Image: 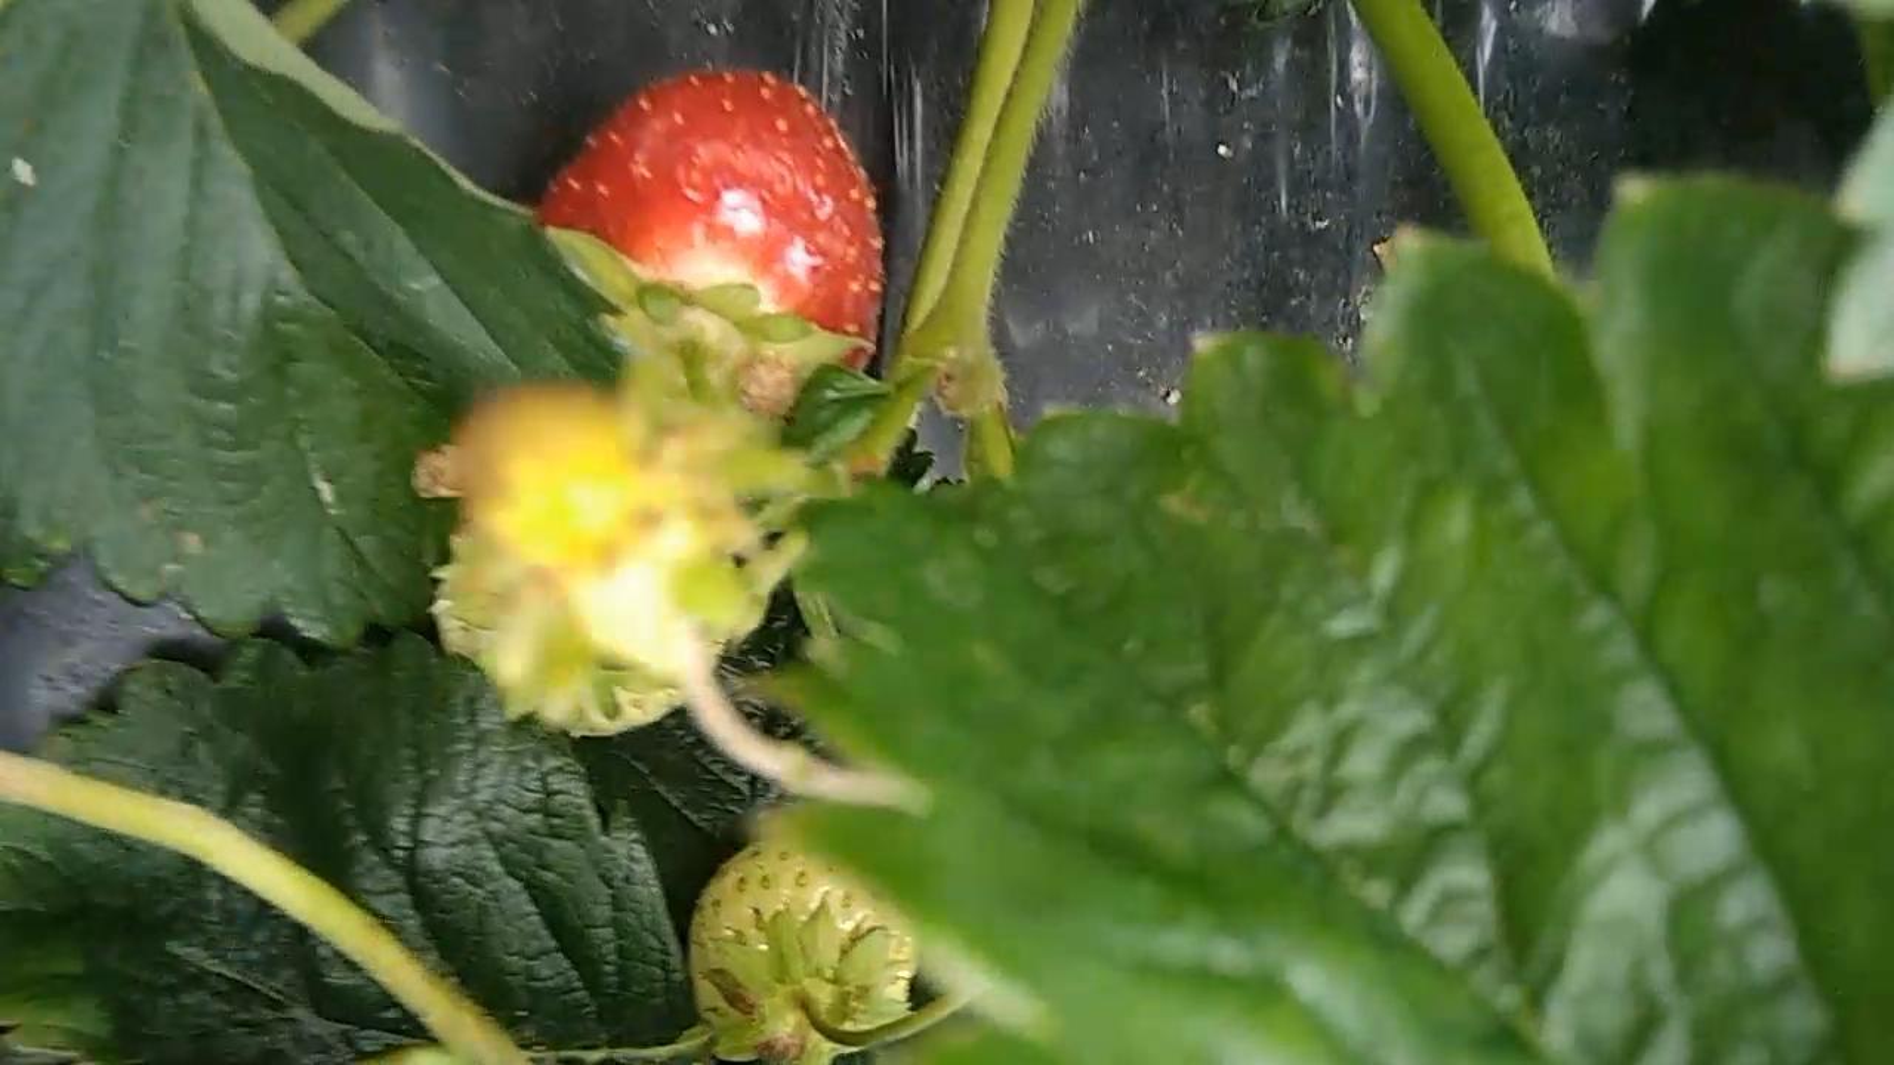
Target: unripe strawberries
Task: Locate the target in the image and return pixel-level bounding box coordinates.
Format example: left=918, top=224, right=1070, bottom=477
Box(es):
left=428, top=435, right=761, bottom=743
left=678, top=829, right=924, bottom=1048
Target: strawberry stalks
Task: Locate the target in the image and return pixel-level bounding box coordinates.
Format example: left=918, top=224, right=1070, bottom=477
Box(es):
left=763, top=934, right=1016, bottom=1051
left=615, top=575, right=806, bottom=797
left=650, top=305, right=832, bottom=469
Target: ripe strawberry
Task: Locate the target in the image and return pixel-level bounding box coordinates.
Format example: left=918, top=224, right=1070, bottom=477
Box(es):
left=523, top=56, right=894, bottom=371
